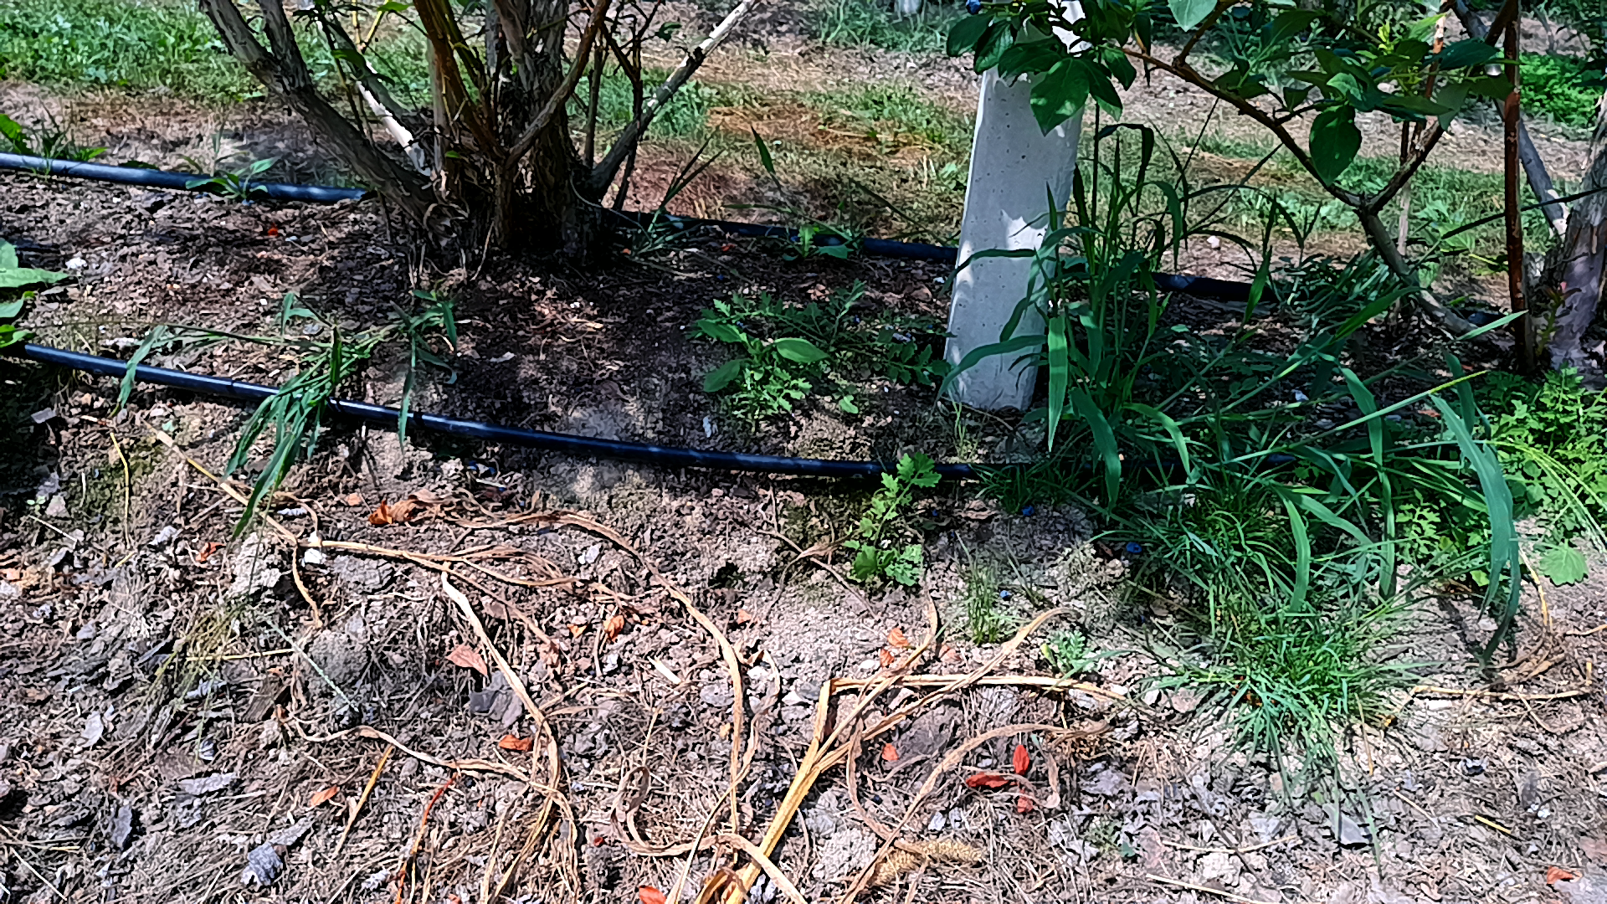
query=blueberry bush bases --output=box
[1342,164,1601,391]
[306,43,692,354]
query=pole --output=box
[930,78,1093,436]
